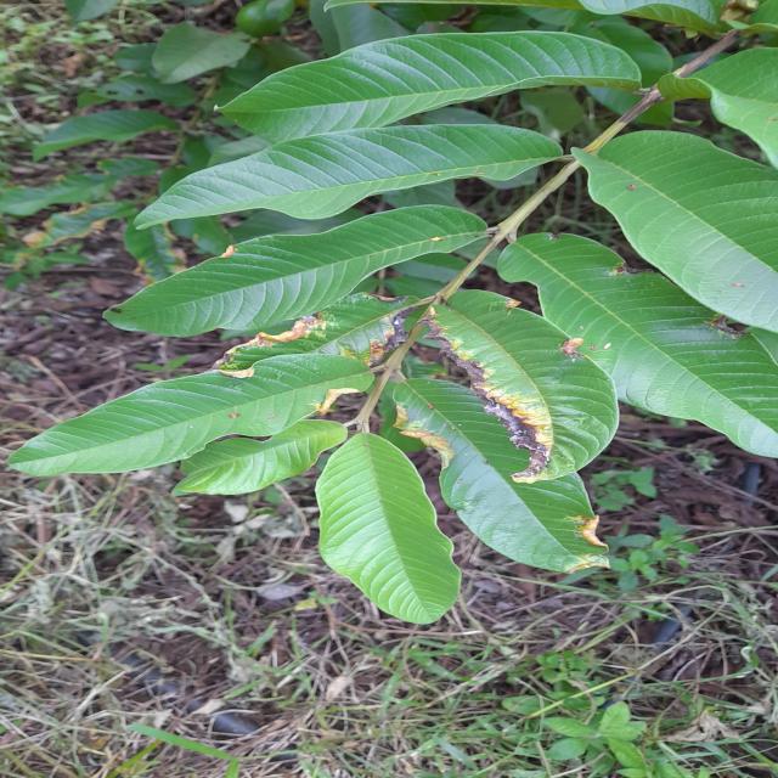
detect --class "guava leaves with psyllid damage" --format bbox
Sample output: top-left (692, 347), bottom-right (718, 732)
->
top-left (0, 351), bottom-right (393, 487)
top-left (412, 278), bottom-right (644, 496)
top-left (384, 349), bottom-right (644, 591)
